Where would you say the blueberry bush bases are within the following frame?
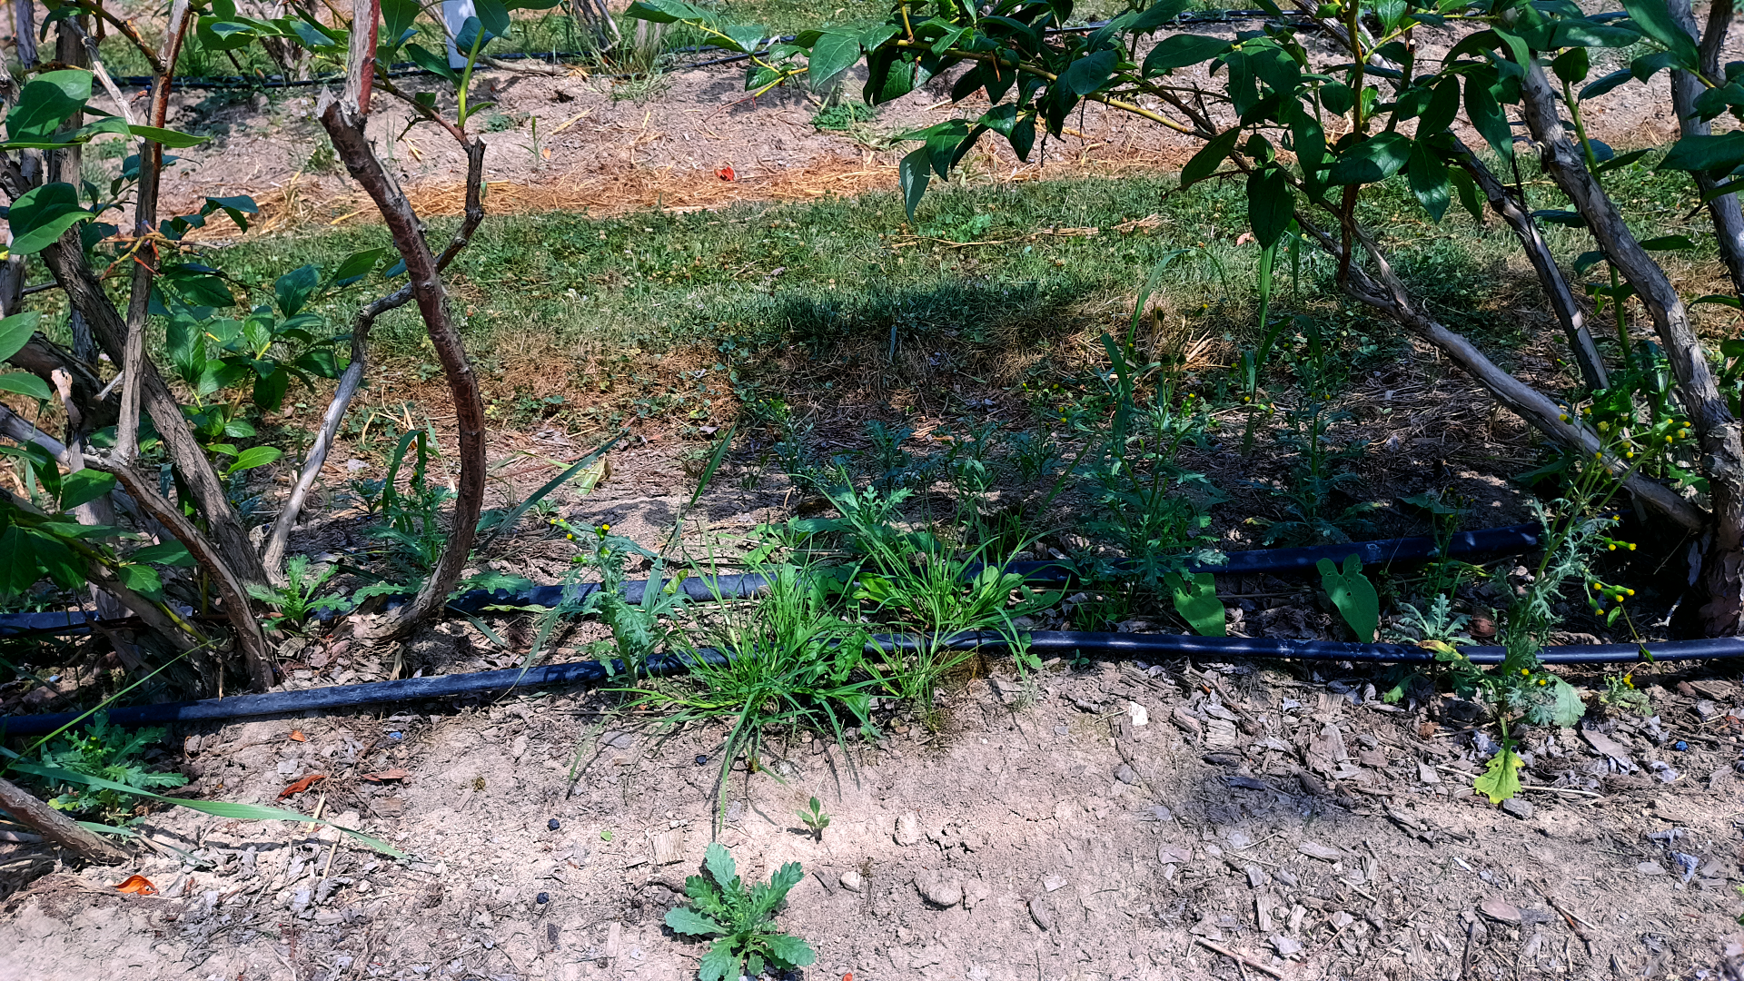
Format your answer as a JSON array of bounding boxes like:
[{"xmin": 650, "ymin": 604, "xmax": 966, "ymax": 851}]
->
[
  {"xmin": 27, "ymin": 385, "xmax": 529, "ymax": 740},
  {"xmin": 1509, "ymin": 322, "xmax": 1744, "ymax": 717}
]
